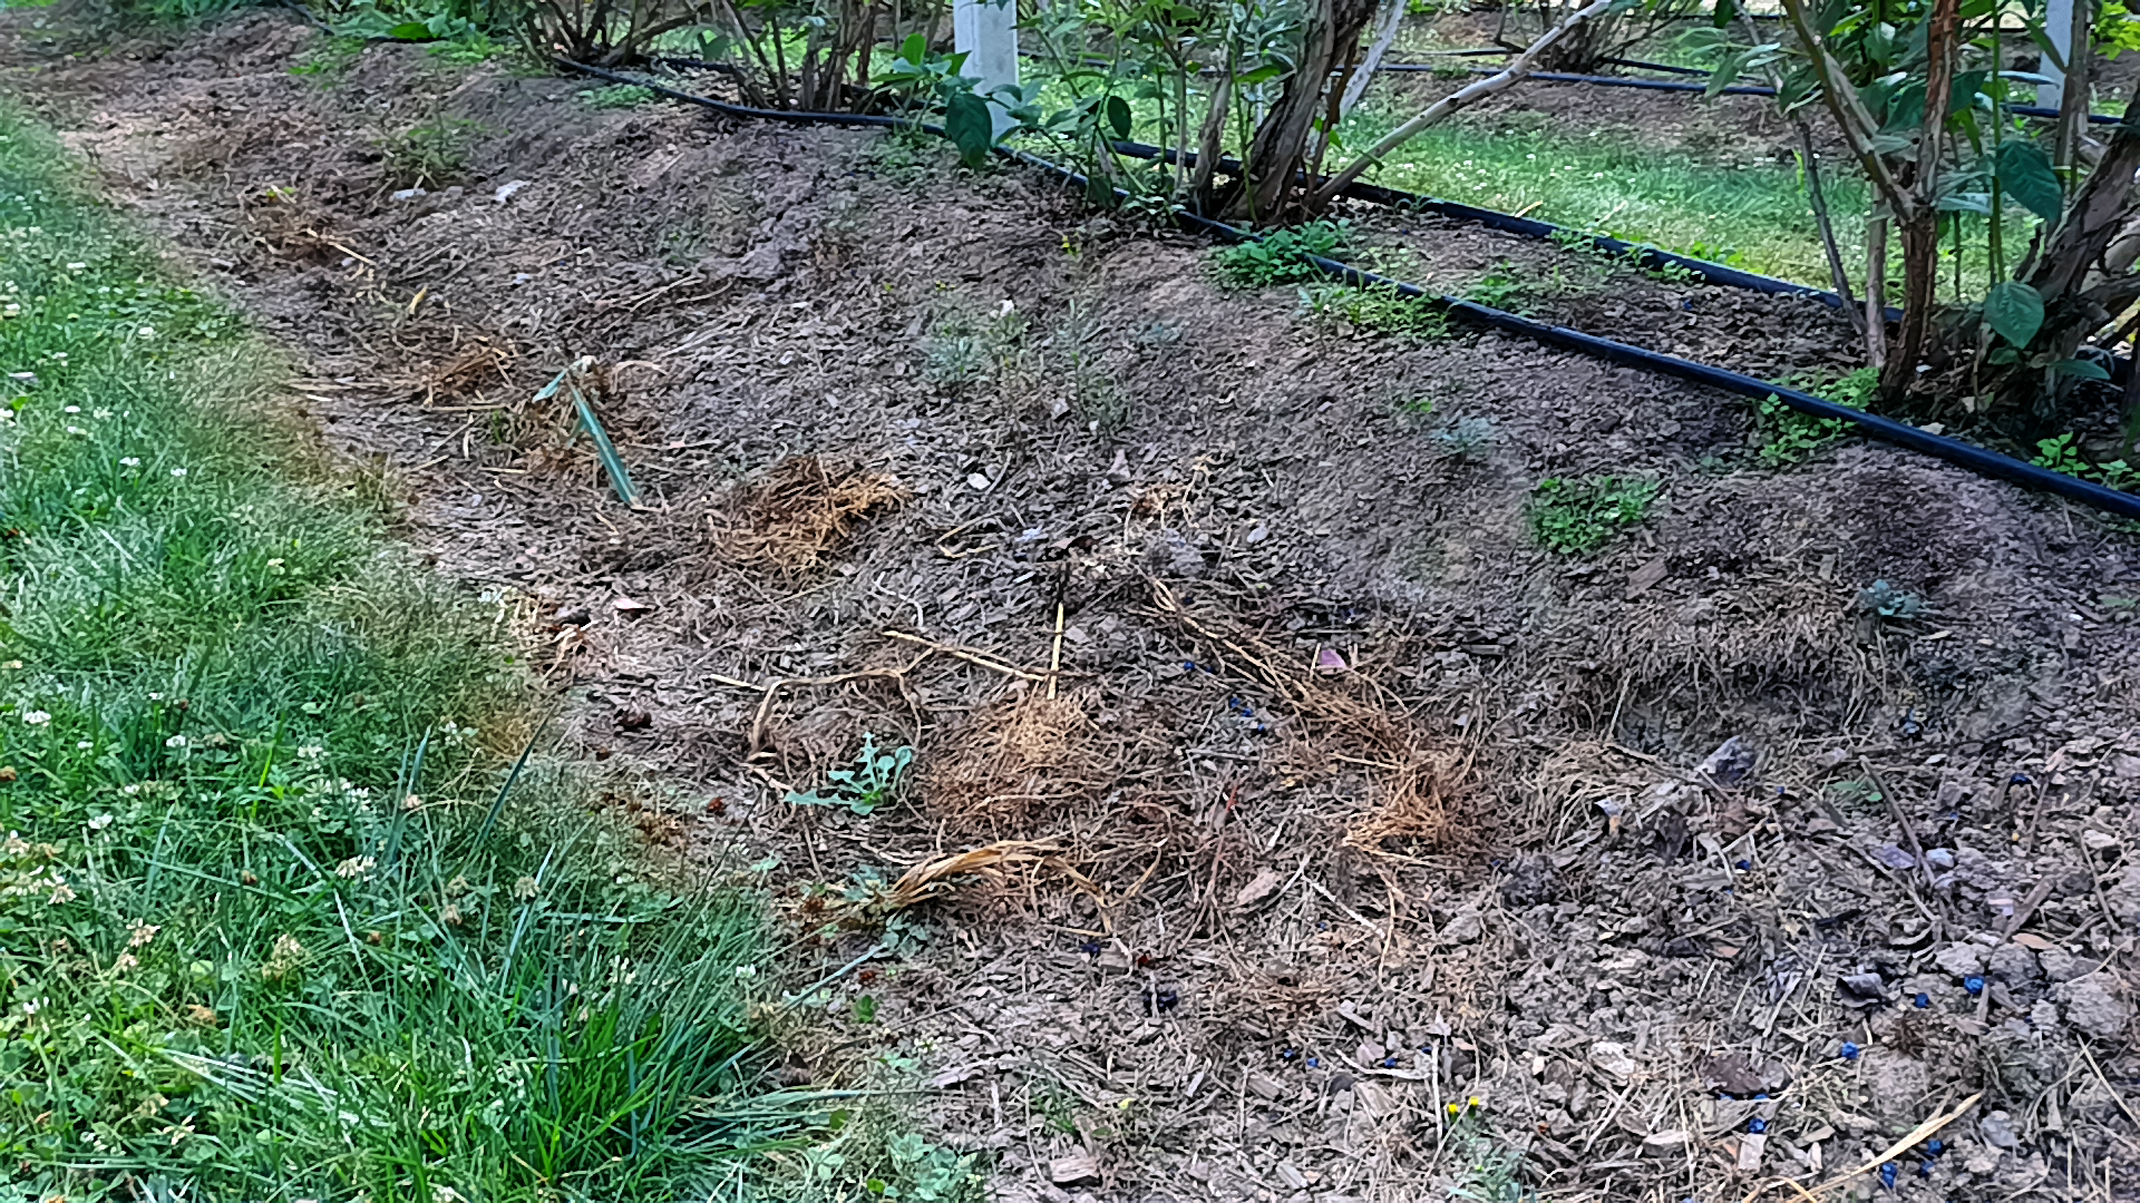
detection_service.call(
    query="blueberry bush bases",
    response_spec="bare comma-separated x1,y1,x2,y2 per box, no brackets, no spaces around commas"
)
712,30,925,164
1764,202,2139,509
504,4,681,110
1071,72,1415,301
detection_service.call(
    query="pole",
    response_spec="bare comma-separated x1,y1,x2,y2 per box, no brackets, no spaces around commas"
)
951,12,1031,151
